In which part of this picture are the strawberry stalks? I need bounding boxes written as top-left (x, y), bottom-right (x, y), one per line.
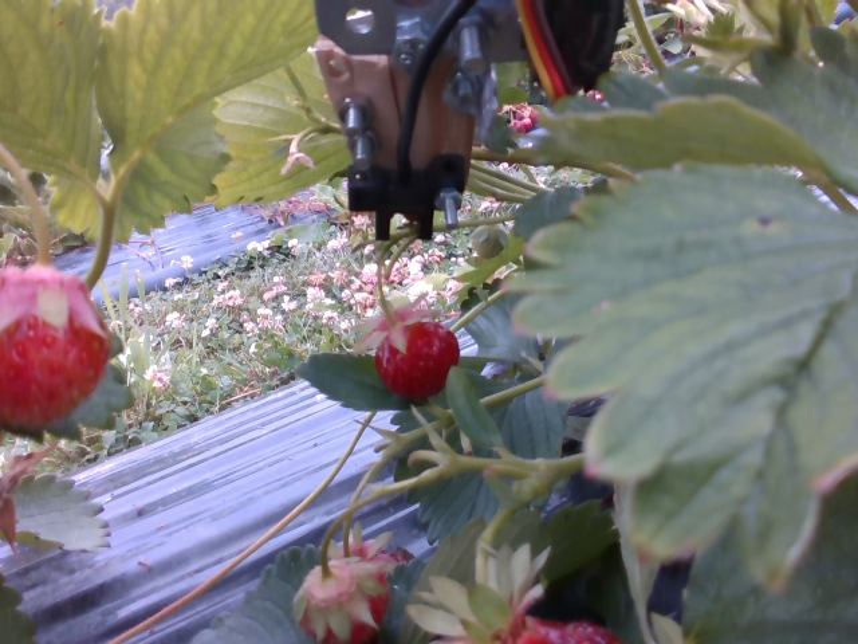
top-left (3, 154), bottom-right (77, 315)
top-left (314, 484), bottom-right (392, 584)
top-left (371, 248), bottom-right (408, 349)
top-left (465, 504), bottom-right (518, 639)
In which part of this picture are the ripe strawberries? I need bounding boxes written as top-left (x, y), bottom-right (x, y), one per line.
top-left (409, 572), bottom-right (635, 644)
top-left (379, 319), bottom-right (464, 397)
top-left (0, 277), bottom-right (116, 422)
top-left (295, 562), bottom-right (382, 644)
